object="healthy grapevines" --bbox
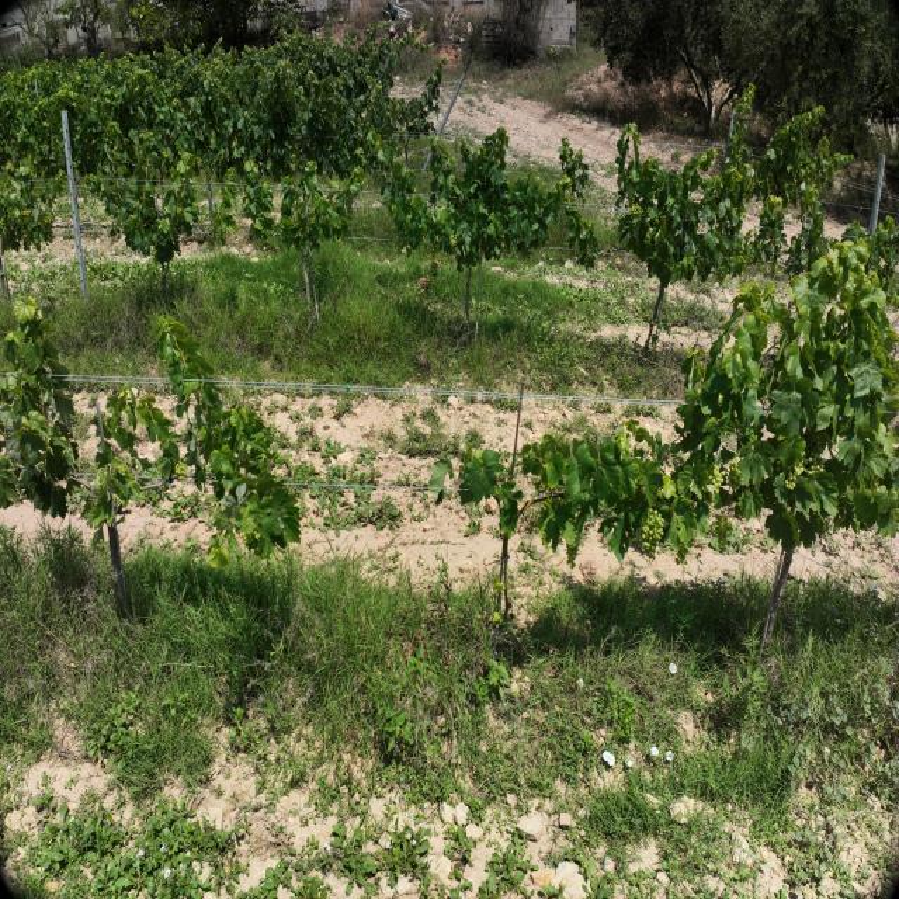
[426,430,678,655]
[685,260,896,688]
[0,336,302,645]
